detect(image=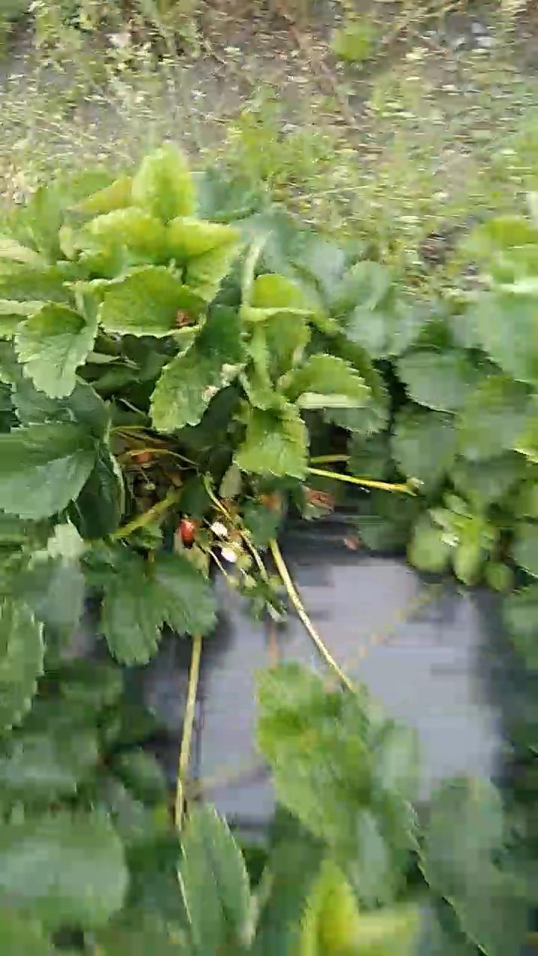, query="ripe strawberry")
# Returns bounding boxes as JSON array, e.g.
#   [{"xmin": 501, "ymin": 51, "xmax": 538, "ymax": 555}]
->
[{"xmin": 179, "ymin": 524, "xmax": 196, "ymax": 544}]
